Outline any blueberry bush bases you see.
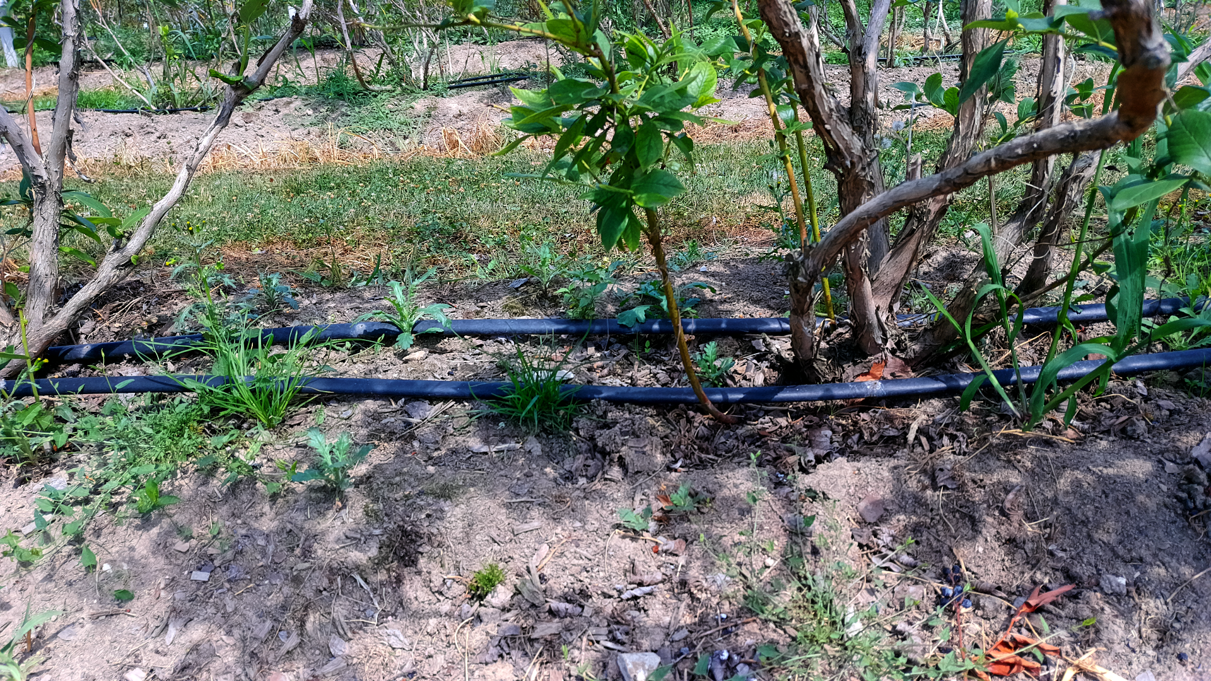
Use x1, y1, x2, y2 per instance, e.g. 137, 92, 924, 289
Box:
334, 47, 465, 119
113, 69, 238, 137
747, 169, 1115, 462
0, 166, 199, 415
